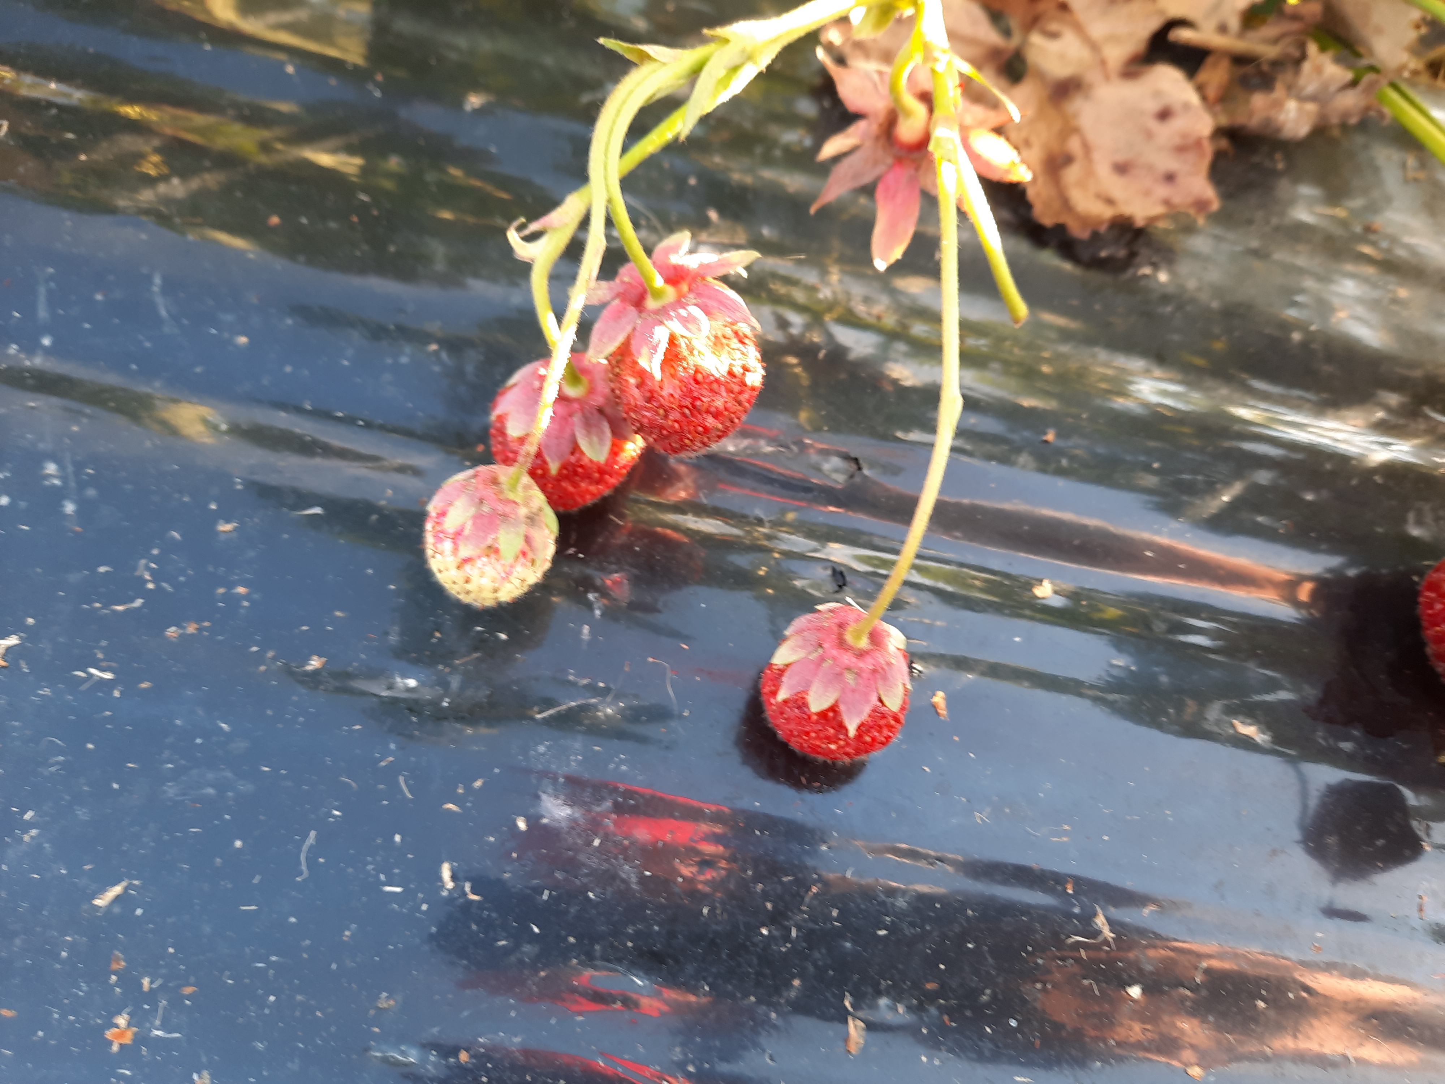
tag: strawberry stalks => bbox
[608,107,697,306]
[520,257,593,421]
[478,334,584,543]
[828,407,967,665]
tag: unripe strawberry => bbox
[422,457,551,617]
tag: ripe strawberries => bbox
[619,281,757,451]
[486,360,643,501]
[761,605,922,759]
